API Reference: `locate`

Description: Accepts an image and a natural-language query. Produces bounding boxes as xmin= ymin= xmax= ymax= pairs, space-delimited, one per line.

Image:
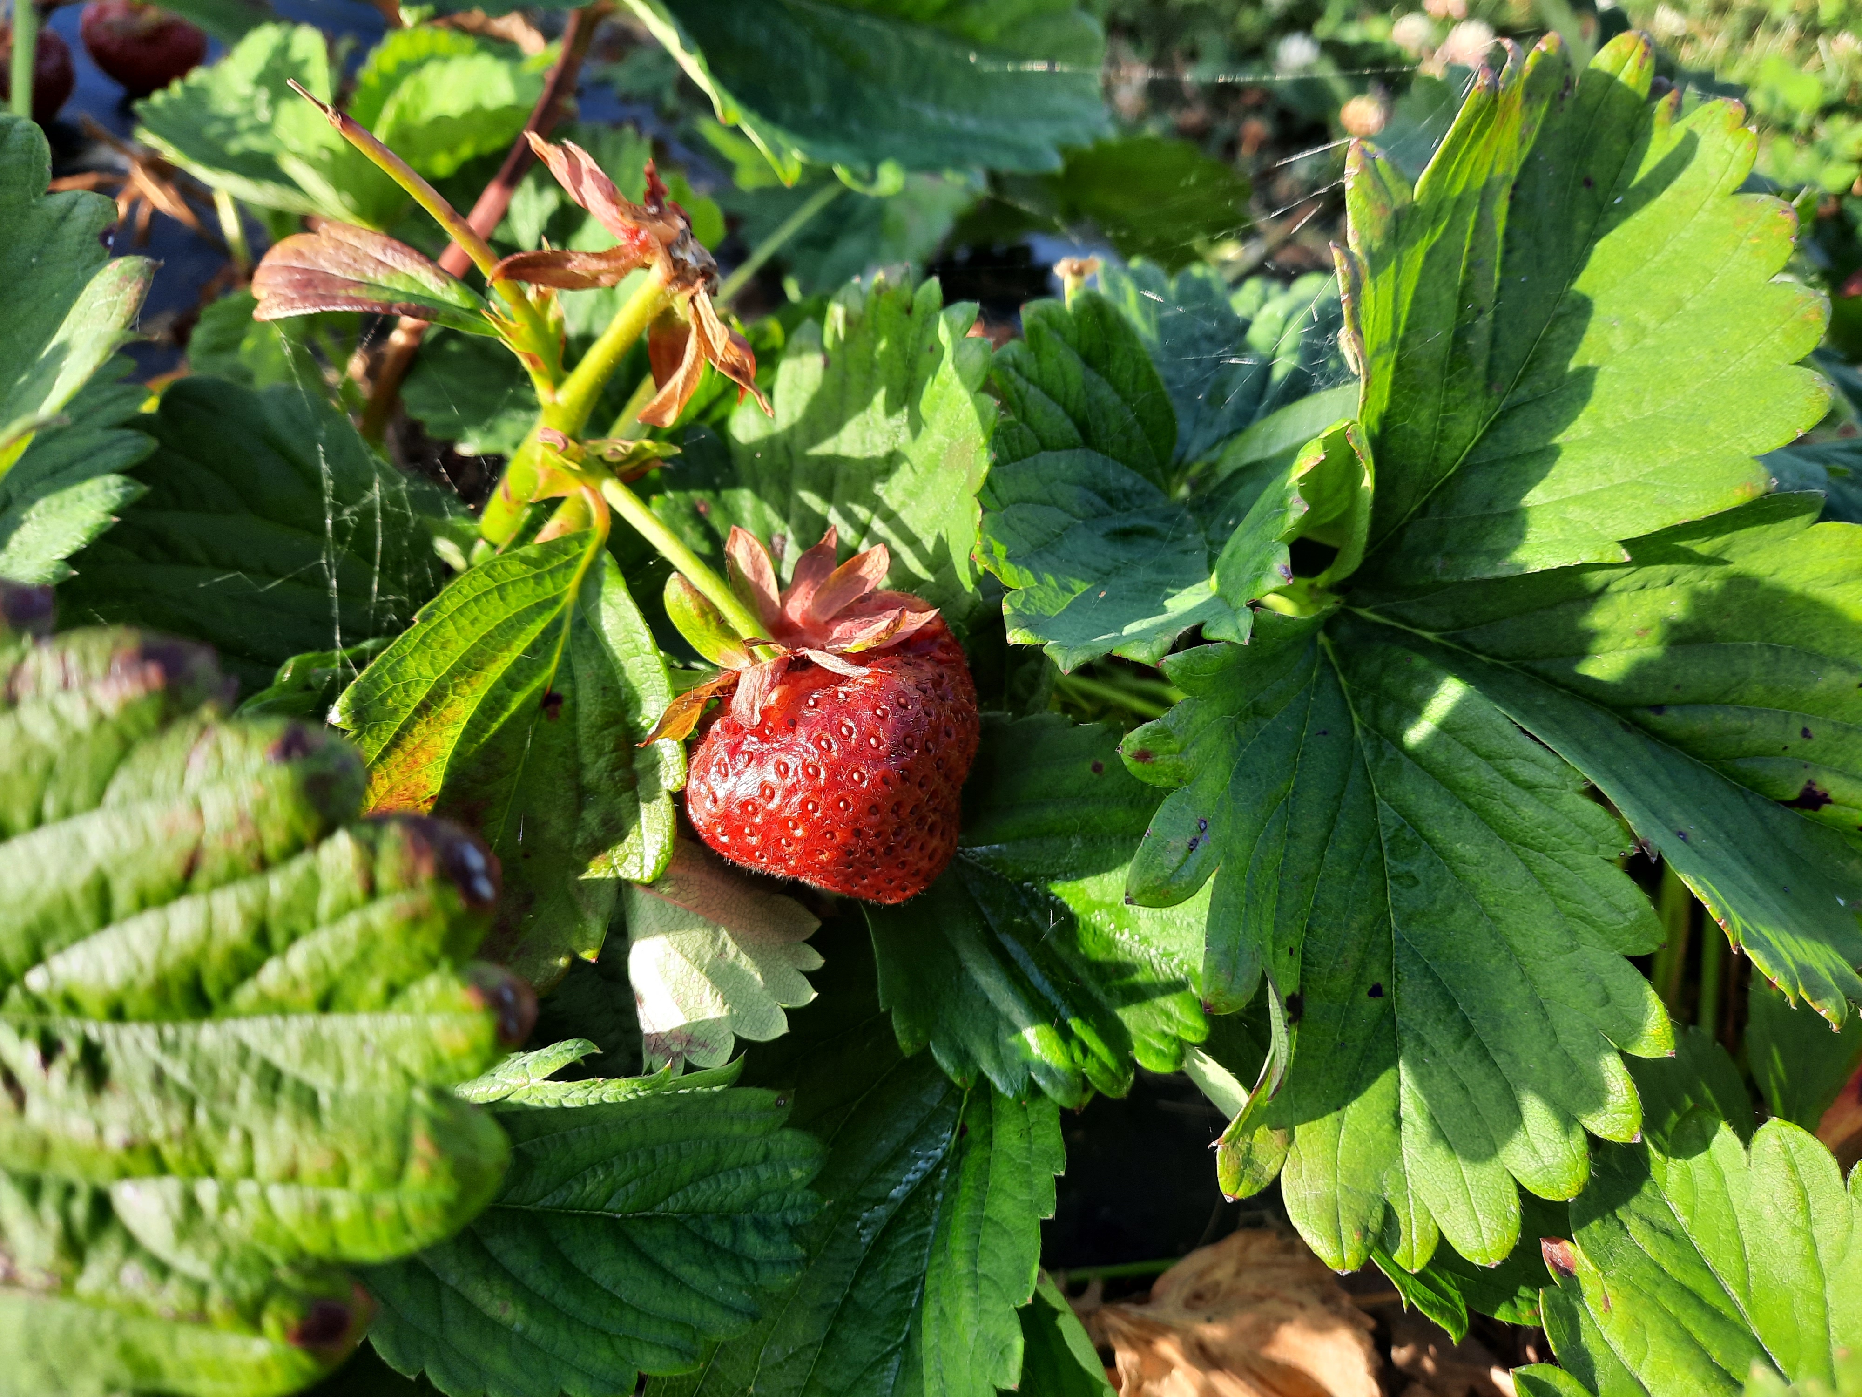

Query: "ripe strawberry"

xmin=687 ymin=589 xmax=989 ymax=903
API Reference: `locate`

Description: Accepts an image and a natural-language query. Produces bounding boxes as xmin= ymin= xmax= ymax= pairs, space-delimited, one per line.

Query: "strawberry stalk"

xmin=602 ymin=457 xmax=804 ymax=709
